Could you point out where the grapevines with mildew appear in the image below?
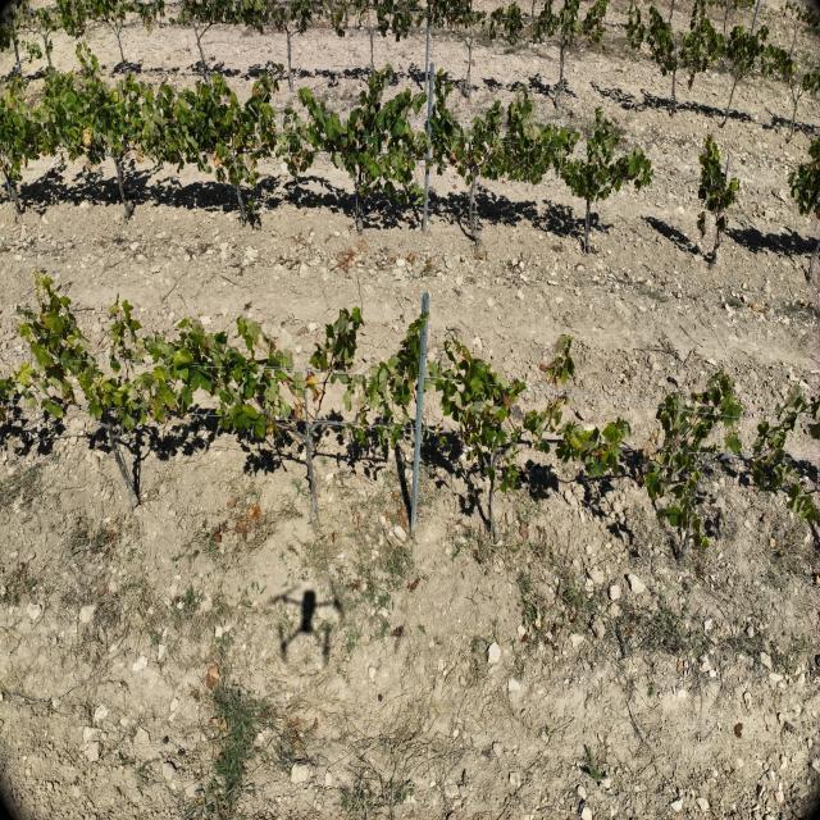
[591,366,820,579]
[422,328,598,559]
[0,273,208,520]
[181,304,430,538]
